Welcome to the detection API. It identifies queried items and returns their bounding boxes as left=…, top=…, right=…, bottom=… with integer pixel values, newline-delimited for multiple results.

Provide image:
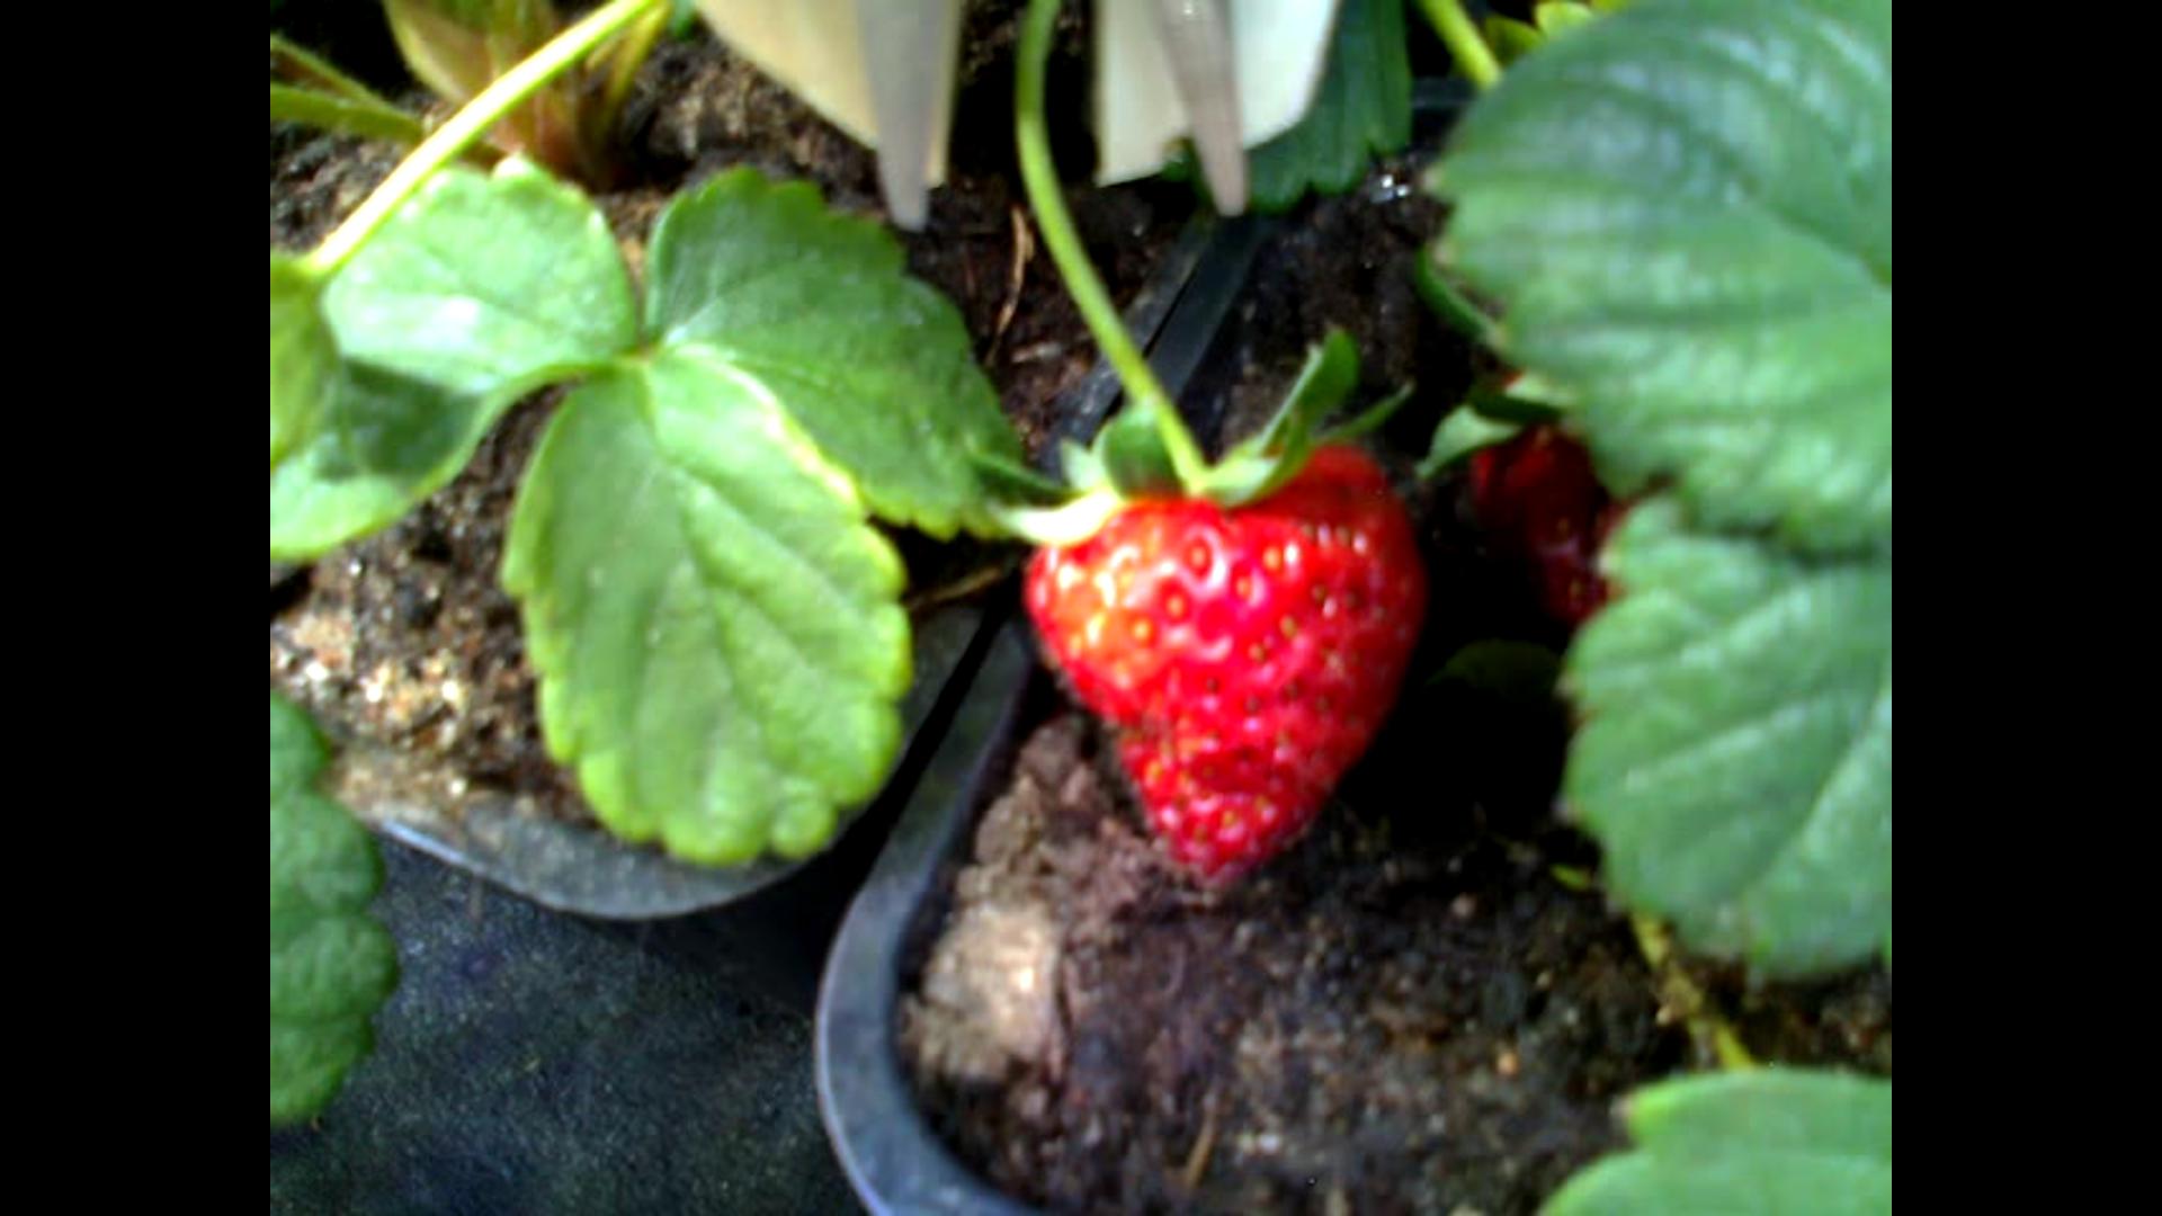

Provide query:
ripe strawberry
left=1006, top=415, right=1459, bottom=899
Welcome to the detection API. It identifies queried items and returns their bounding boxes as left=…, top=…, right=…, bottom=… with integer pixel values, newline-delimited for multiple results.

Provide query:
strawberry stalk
left=994, top=59, right=1254, bottom=510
